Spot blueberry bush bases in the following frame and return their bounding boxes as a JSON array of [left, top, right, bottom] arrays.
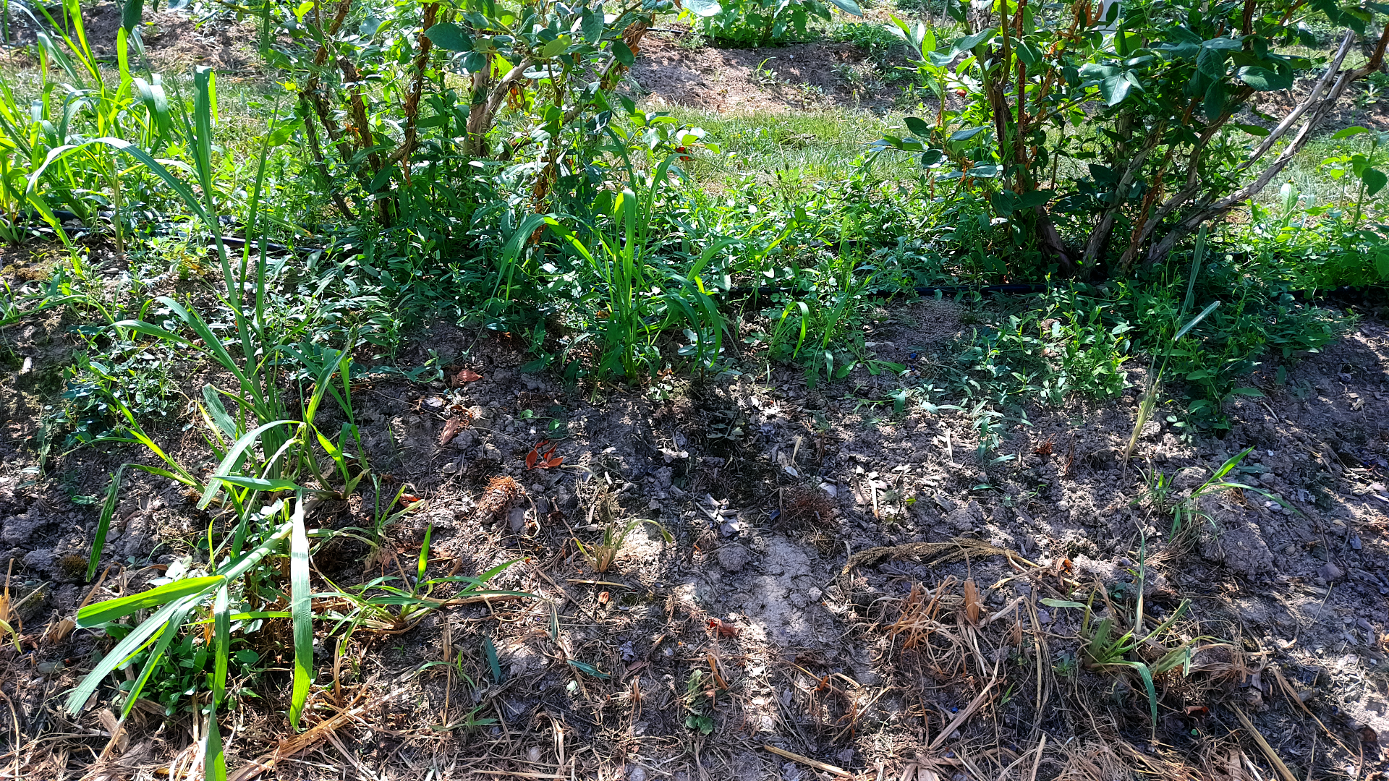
[[953, 141, 1286, 354], [282, 122, 587, 323]]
